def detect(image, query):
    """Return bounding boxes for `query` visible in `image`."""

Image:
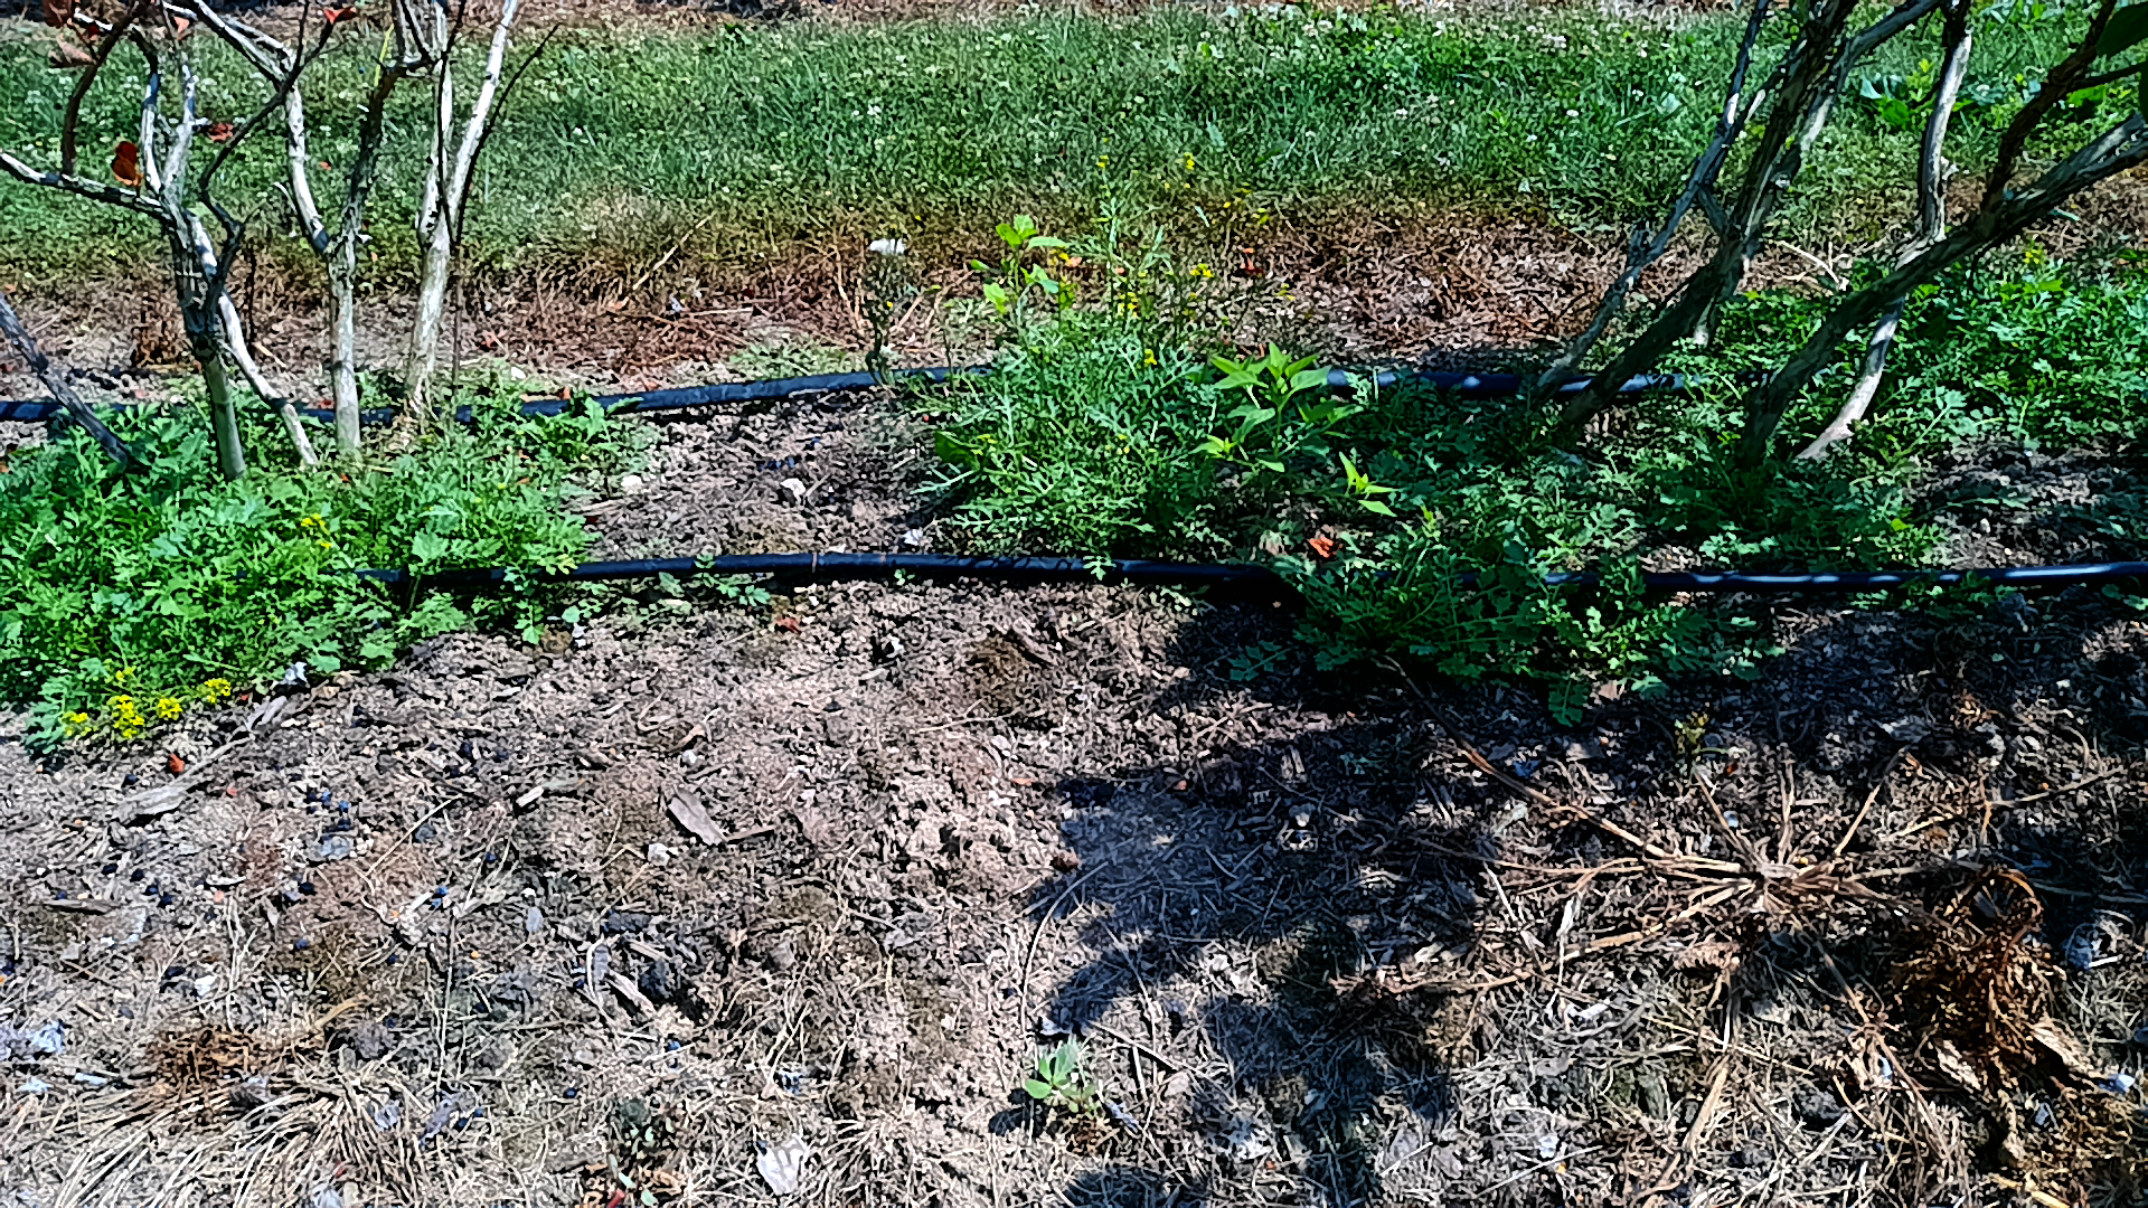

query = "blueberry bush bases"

[2,162,533,647]
[1506,182,1945,613]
